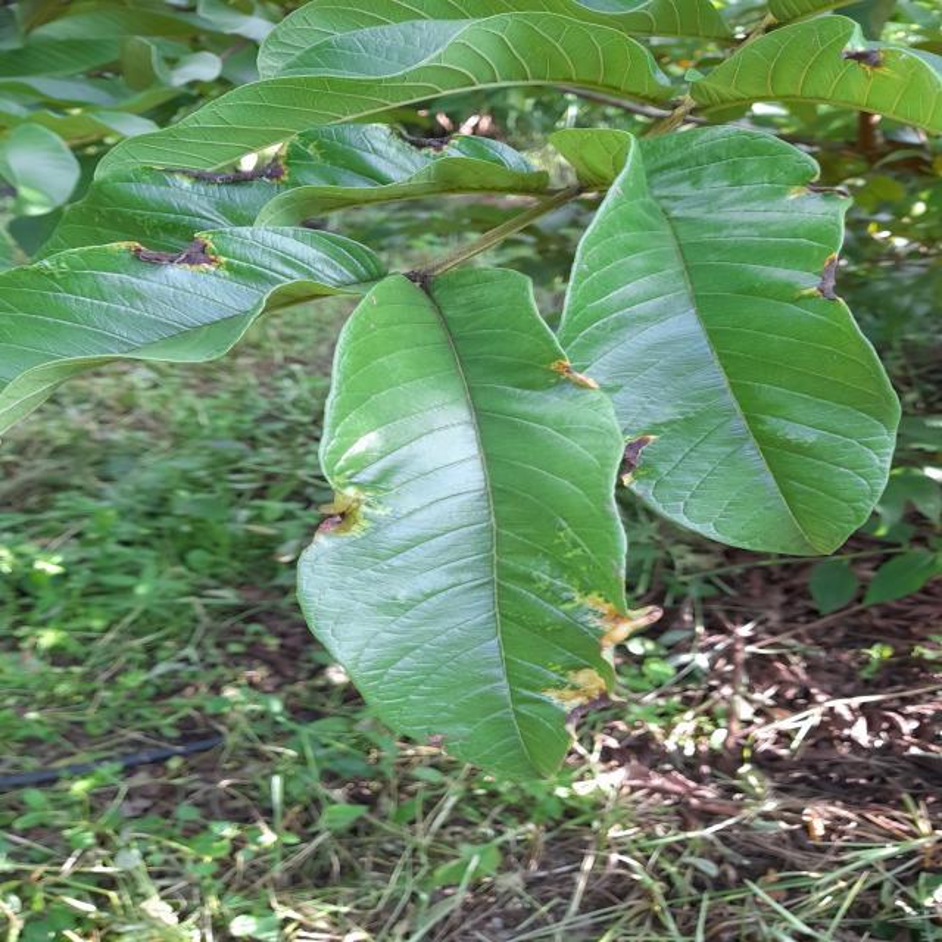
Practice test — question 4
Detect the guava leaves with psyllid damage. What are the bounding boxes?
[290,263,656,822]
[549,121,924,557]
